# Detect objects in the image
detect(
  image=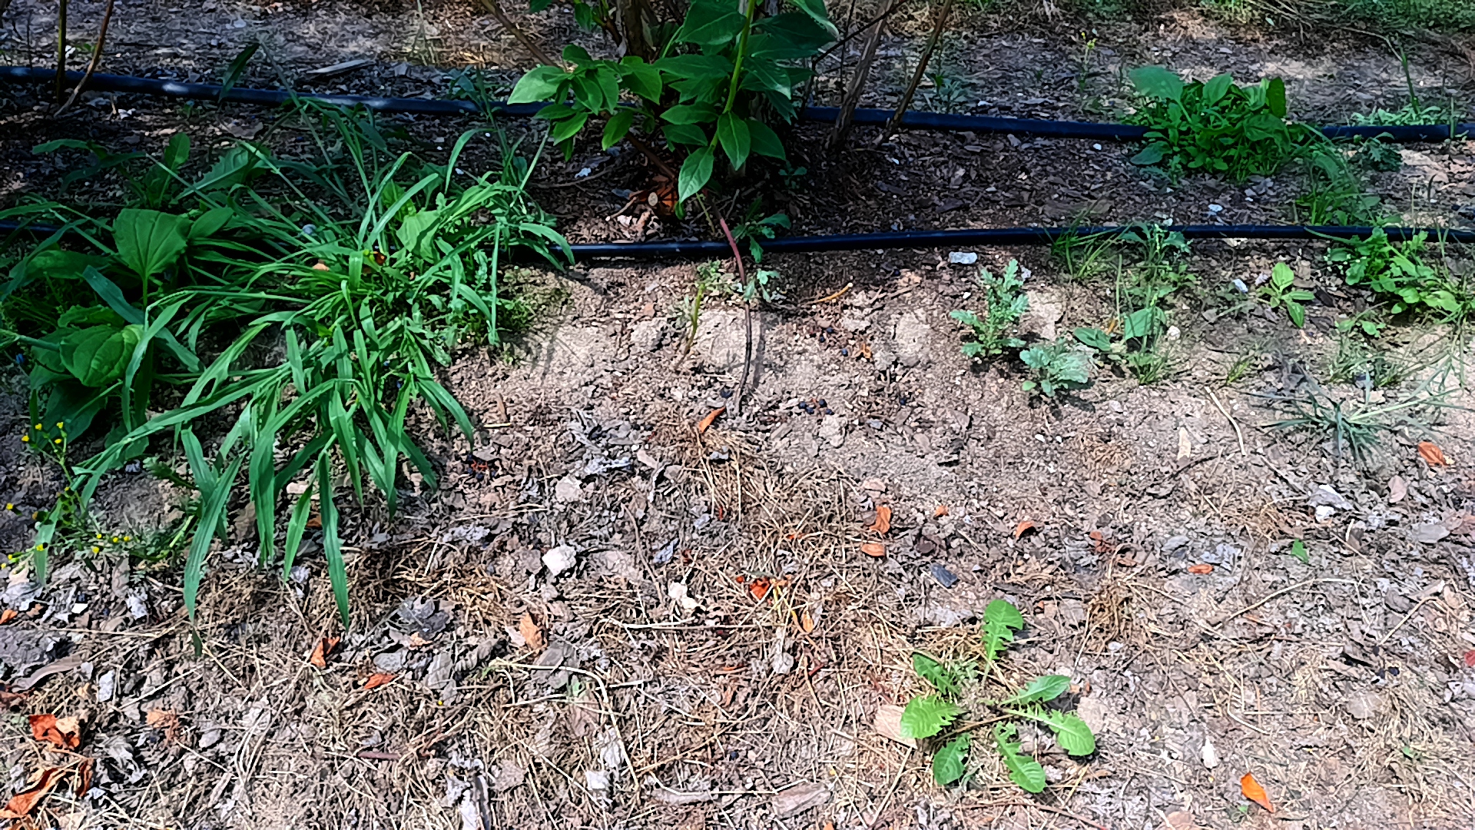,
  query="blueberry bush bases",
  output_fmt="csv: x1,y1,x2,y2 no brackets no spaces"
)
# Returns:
8,0,142,149
546,16,966,255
